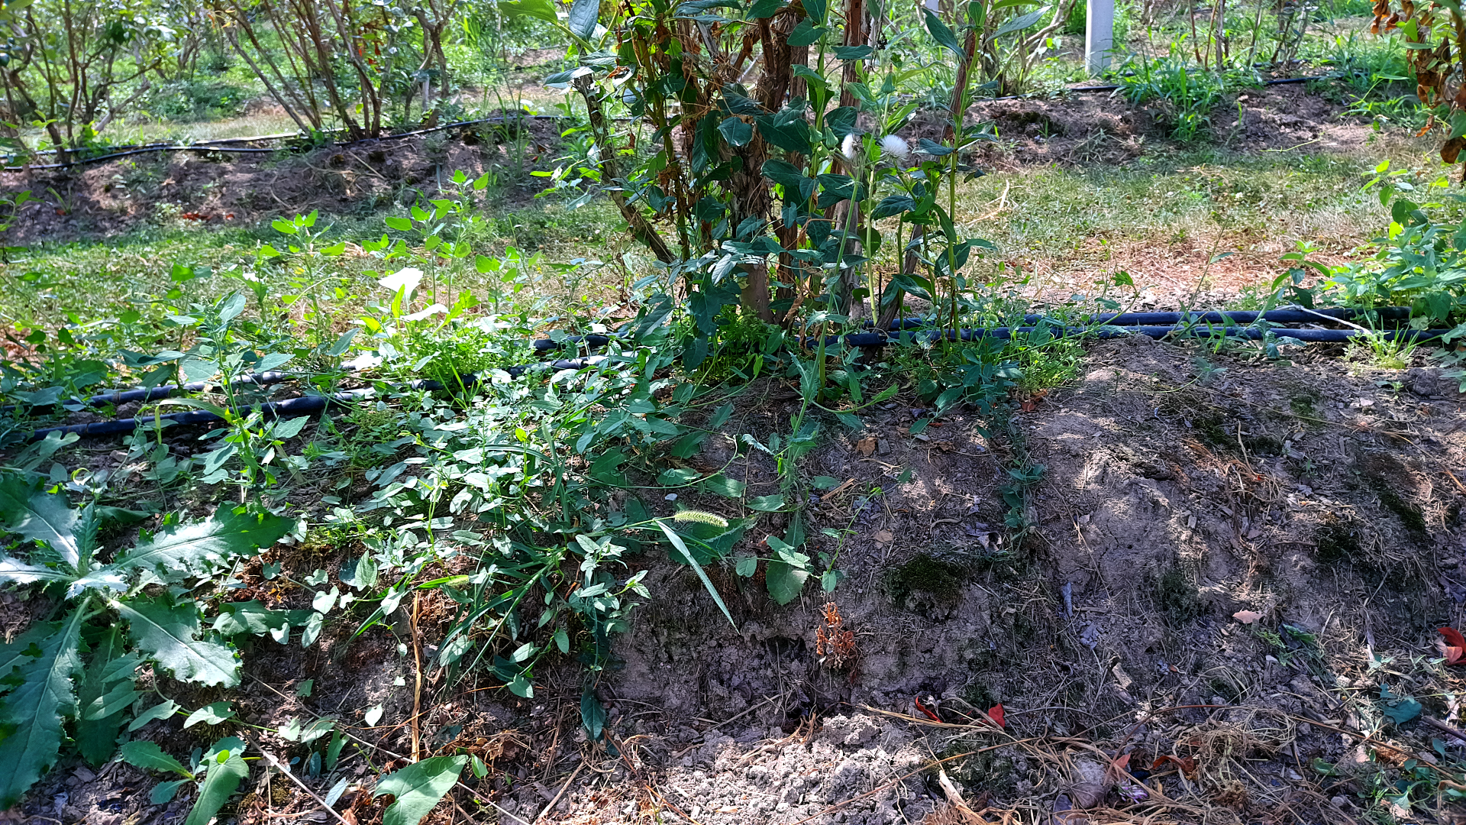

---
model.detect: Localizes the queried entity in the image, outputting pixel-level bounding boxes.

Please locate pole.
[1083,8,1120,83]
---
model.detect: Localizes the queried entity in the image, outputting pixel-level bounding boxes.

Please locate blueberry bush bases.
[3,93,134,193]
[970,48,1058,114]
[252,73,460,173]
[608,215,980,444]
[1190,14,1317,96]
